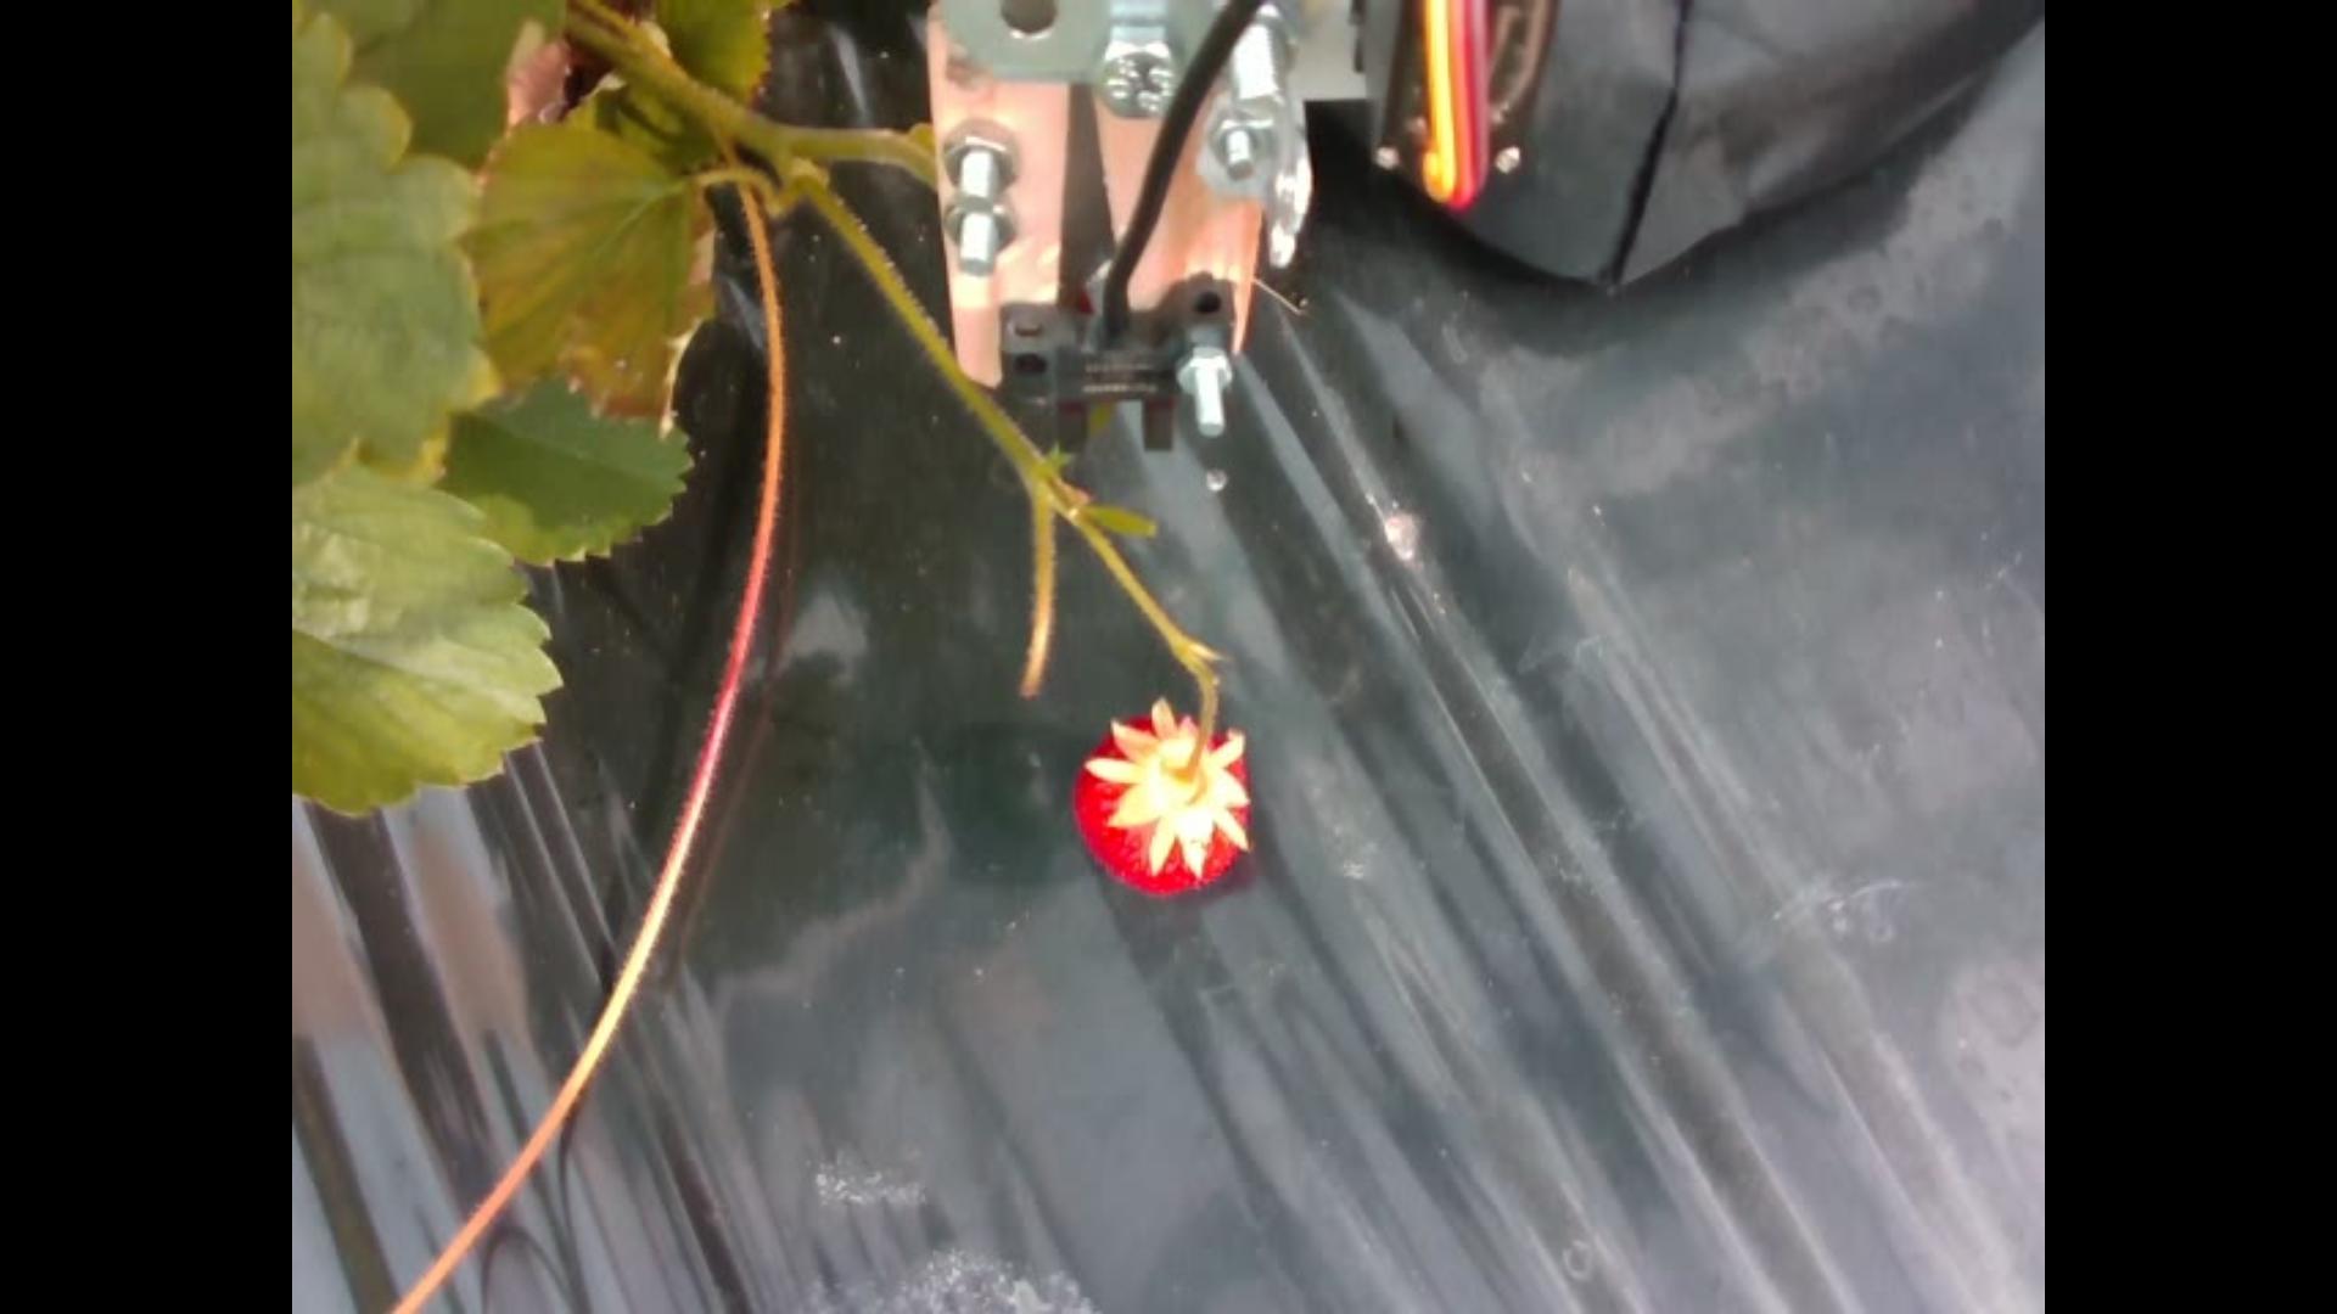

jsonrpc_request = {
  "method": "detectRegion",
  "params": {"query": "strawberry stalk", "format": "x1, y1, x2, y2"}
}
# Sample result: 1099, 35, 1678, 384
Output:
1086, 563, 1232, 767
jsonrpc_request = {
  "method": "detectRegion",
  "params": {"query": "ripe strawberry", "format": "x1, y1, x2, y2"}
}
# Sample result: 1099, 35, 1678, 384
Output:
1053, 709, 1302, 908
